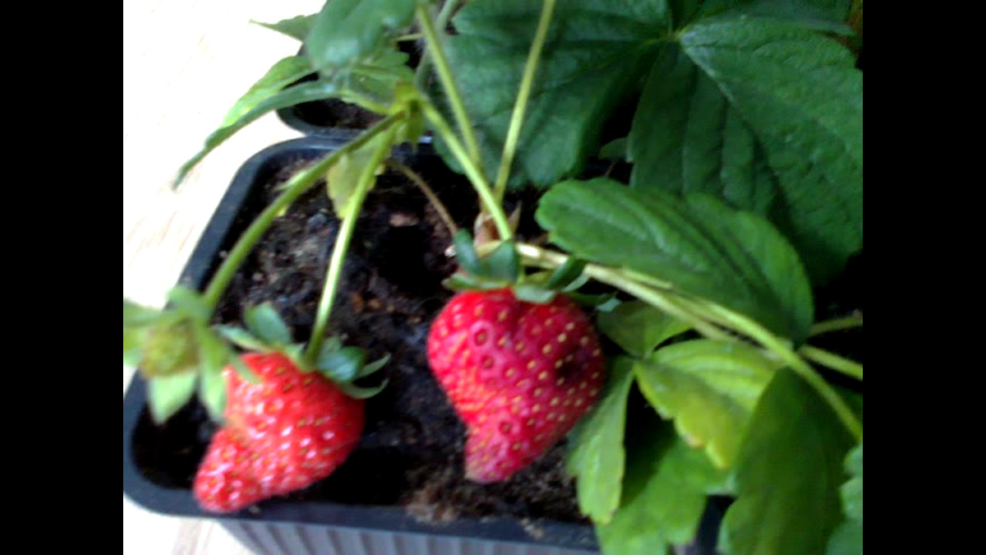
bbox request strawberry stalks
[437,121,527,289]
[182,215,266,315]
[311,151,369,397]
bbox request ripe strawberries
[199,328,355,505]
[433,261,614,485]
